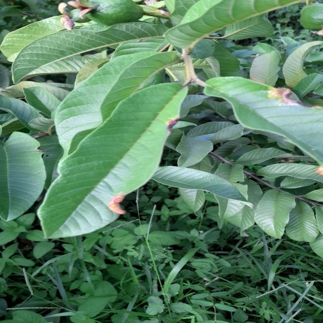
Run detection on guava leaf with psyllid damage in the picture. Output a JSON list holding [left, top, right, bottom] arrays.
[[28, 76, 195, 248]]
